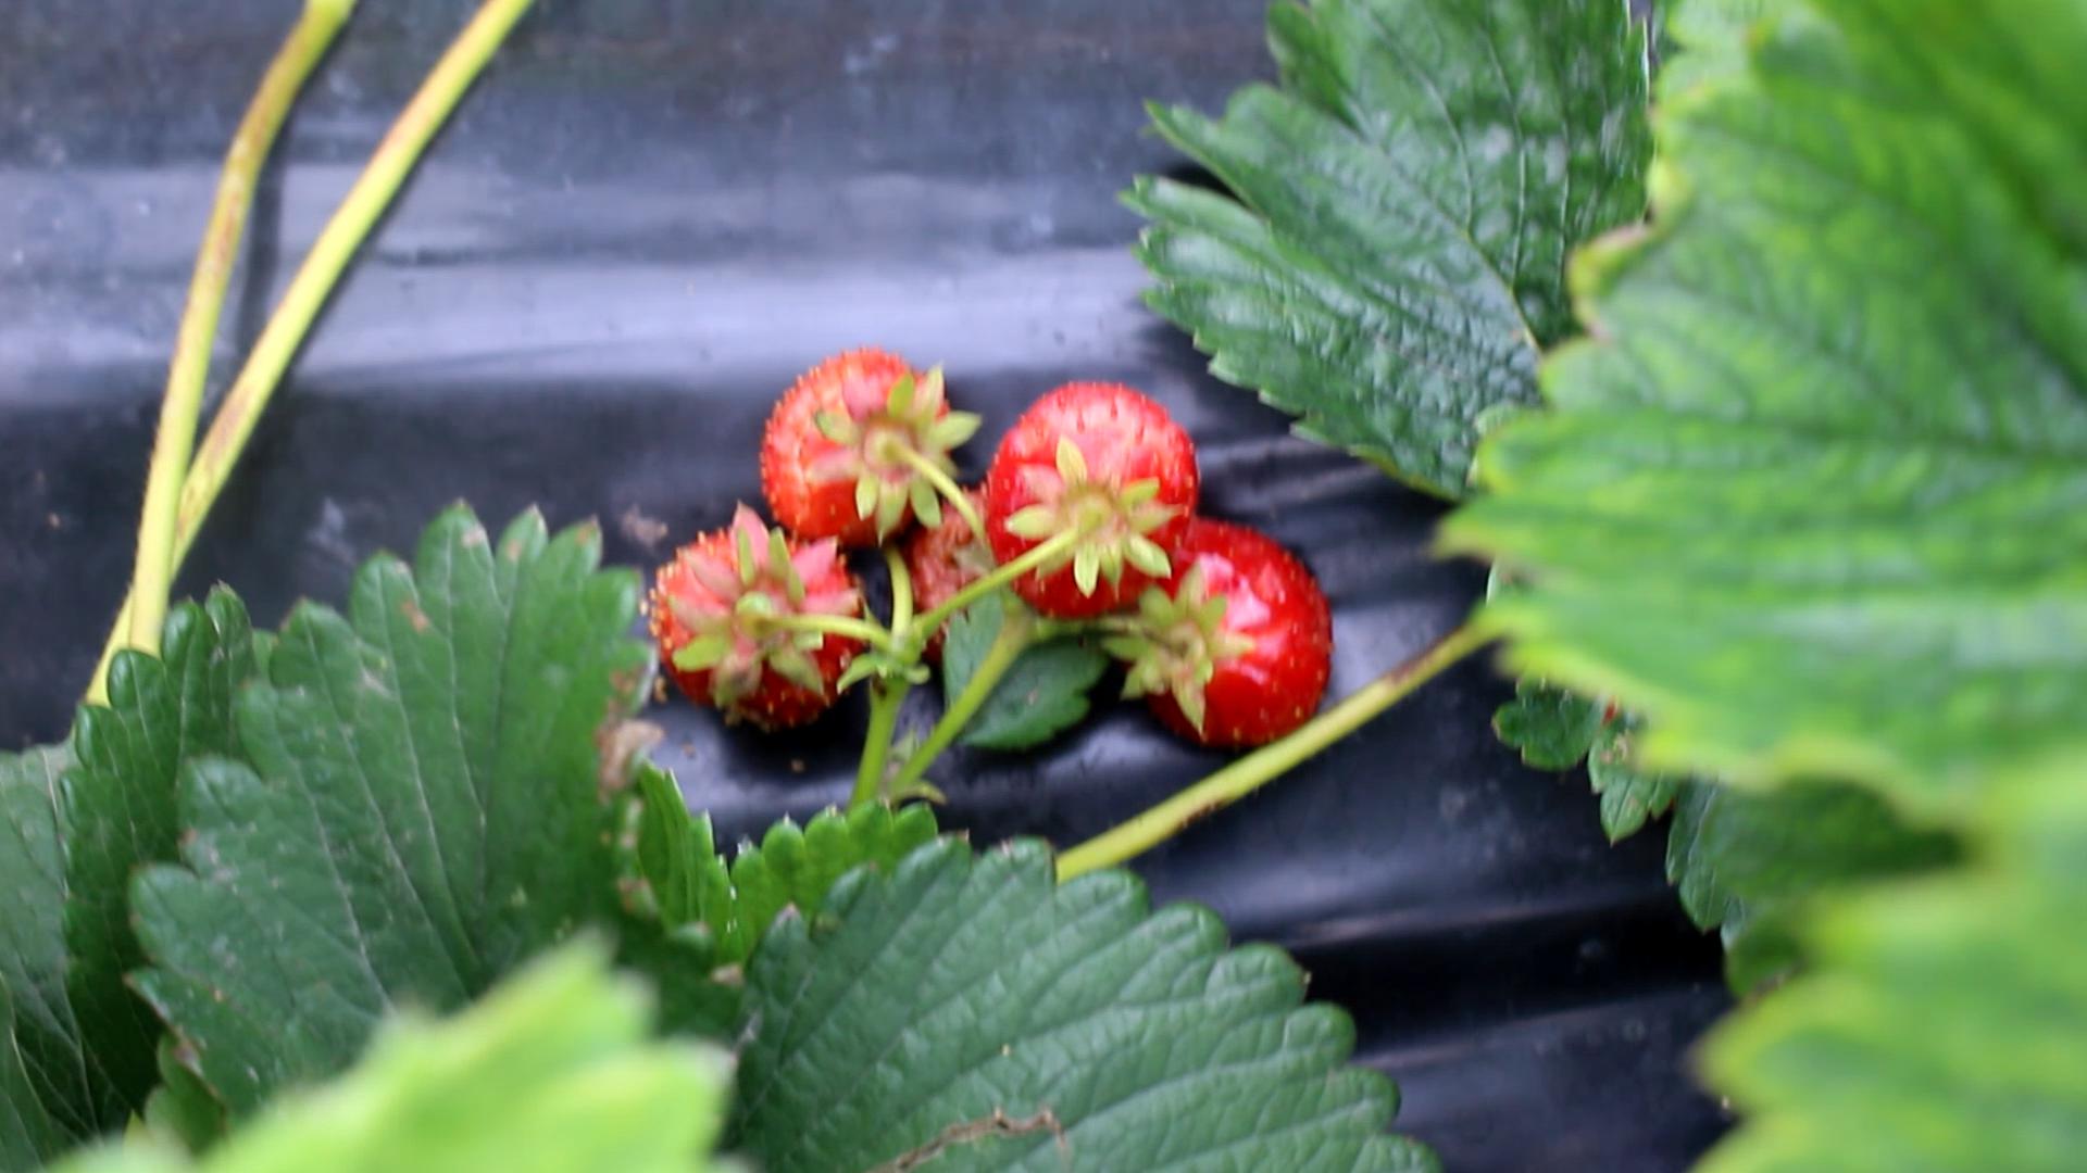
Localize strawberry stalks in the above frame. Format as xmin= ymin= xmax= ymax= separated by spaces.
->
xmin=1093 ymin=584 xmax=1216 ymax=663
xmin=1004 ymin=465 xmax=1143 ymax=581
xmin=735 ymin=574 xmax=856 ymax=652
xmin=826 ymin=395 xmax=968 ymax=496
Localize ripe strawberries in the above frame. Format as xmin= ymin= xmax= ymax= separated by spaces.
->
xmin=1104 ymin=516 xmax=1346 ymax=751
xmin=975 ymin=373 xmax=1208 ymax=605
xmin=744 ymin=346 xmax=954 ymax=544
xmin=903 ymin=496 xmax=1055 ymax=654
xmin=658 ymin=521 xmax=873 ymax=736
